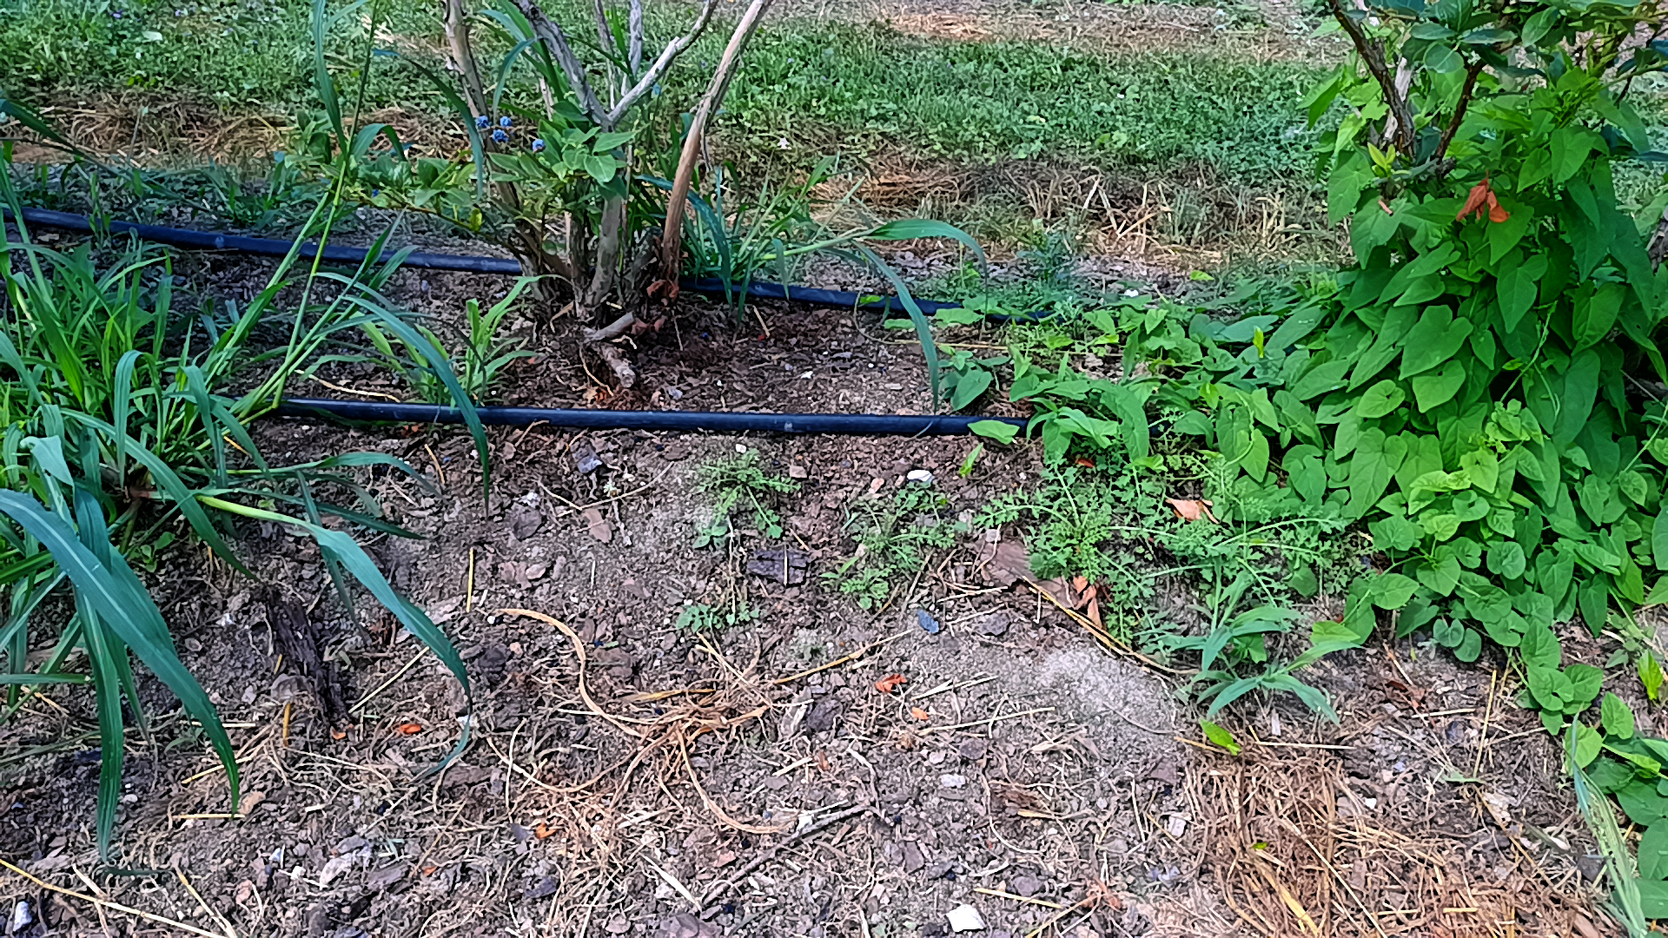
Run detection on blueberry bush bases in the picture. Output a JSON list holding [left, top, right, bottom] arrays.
[[1307, 31, 1656, 503], [436, 118, 759, 424]]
